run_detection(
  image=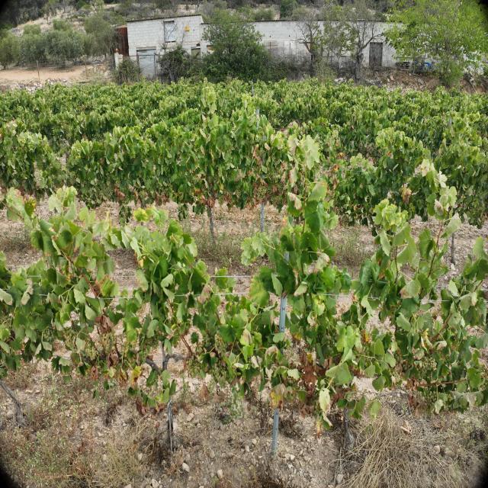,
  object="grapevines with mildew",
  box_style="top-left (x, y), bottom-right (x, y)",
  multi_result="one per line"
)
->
top-left (10, 204), bottom-right (258, 481)
top-left (253, 212), bottom-right (488, 471)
